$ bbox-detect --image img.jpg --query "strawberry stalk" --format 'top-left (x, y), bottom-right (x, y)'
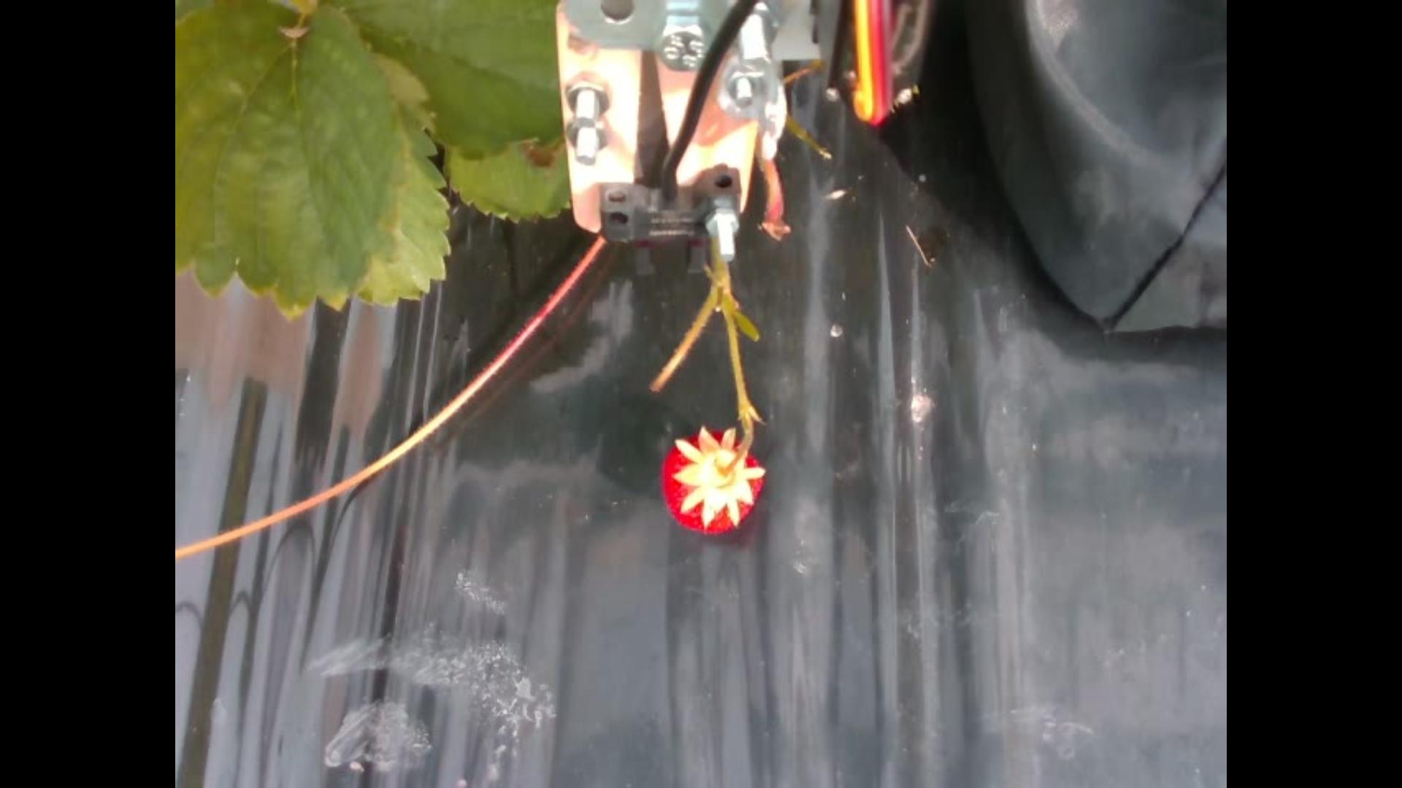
top-left (715, 298), bottom-right (762, 490)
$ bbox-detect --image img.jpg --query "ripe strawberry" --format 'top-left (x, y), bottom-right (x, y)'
top-left (662, 428), bottom-right (773, 531)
